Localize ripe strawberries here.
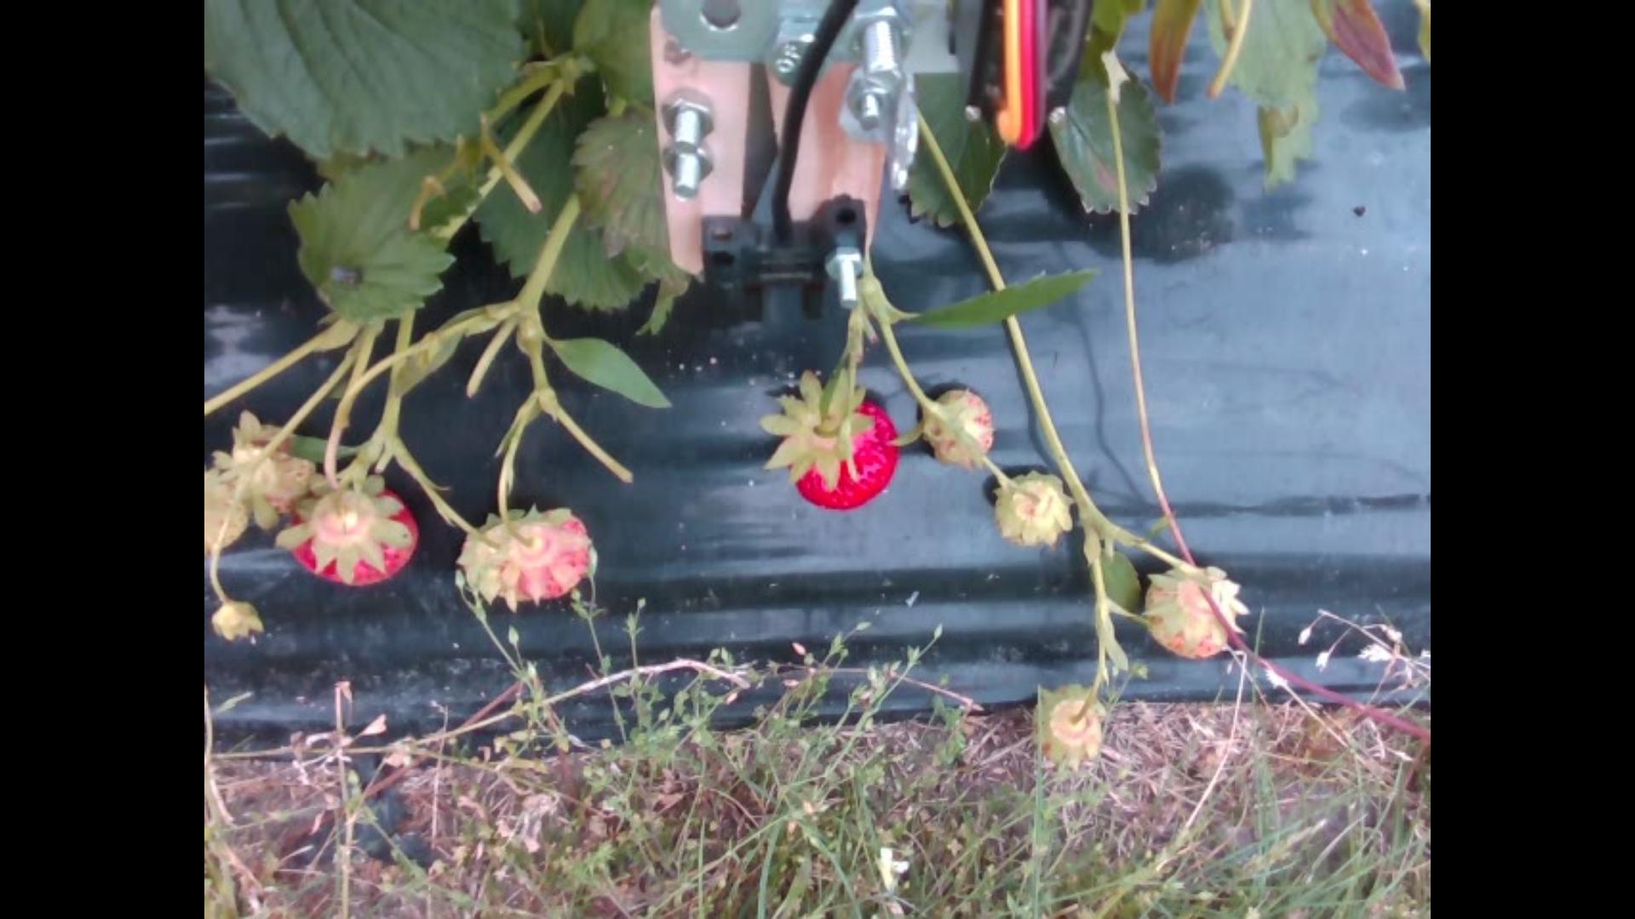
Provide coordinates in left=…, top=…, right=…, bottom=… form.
left=293, top=474, right=431, bottom=597
left=774, top=381, right=906, bottom=511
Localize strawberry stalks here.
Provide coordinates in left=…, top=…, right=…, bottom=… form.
left=207, top=542, right=239, bottom=622
left=494, top=437, right=533, bottom=551
left=318, top=454, right=376, bottom=534
left=817, top=339, right=866, bottom=438
left=976, top=435, right=1016, bottom=493
left=910, top=367, right=955, bottom=430
left=1158, top=547, right=1223, bottom=587
left=1072, top=676, right=1102, bottom=734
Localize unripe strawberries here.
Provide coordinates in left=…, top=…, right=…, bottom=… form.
left=1141, top=565, right=1247, bottom=657
left=924, top=385, right=998, bottom=470
left=989, top=464, right=1079, bottom=547
left=1032, top=690, right=1102, bottom=769
left=467, top=515, right=588, bottom=603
